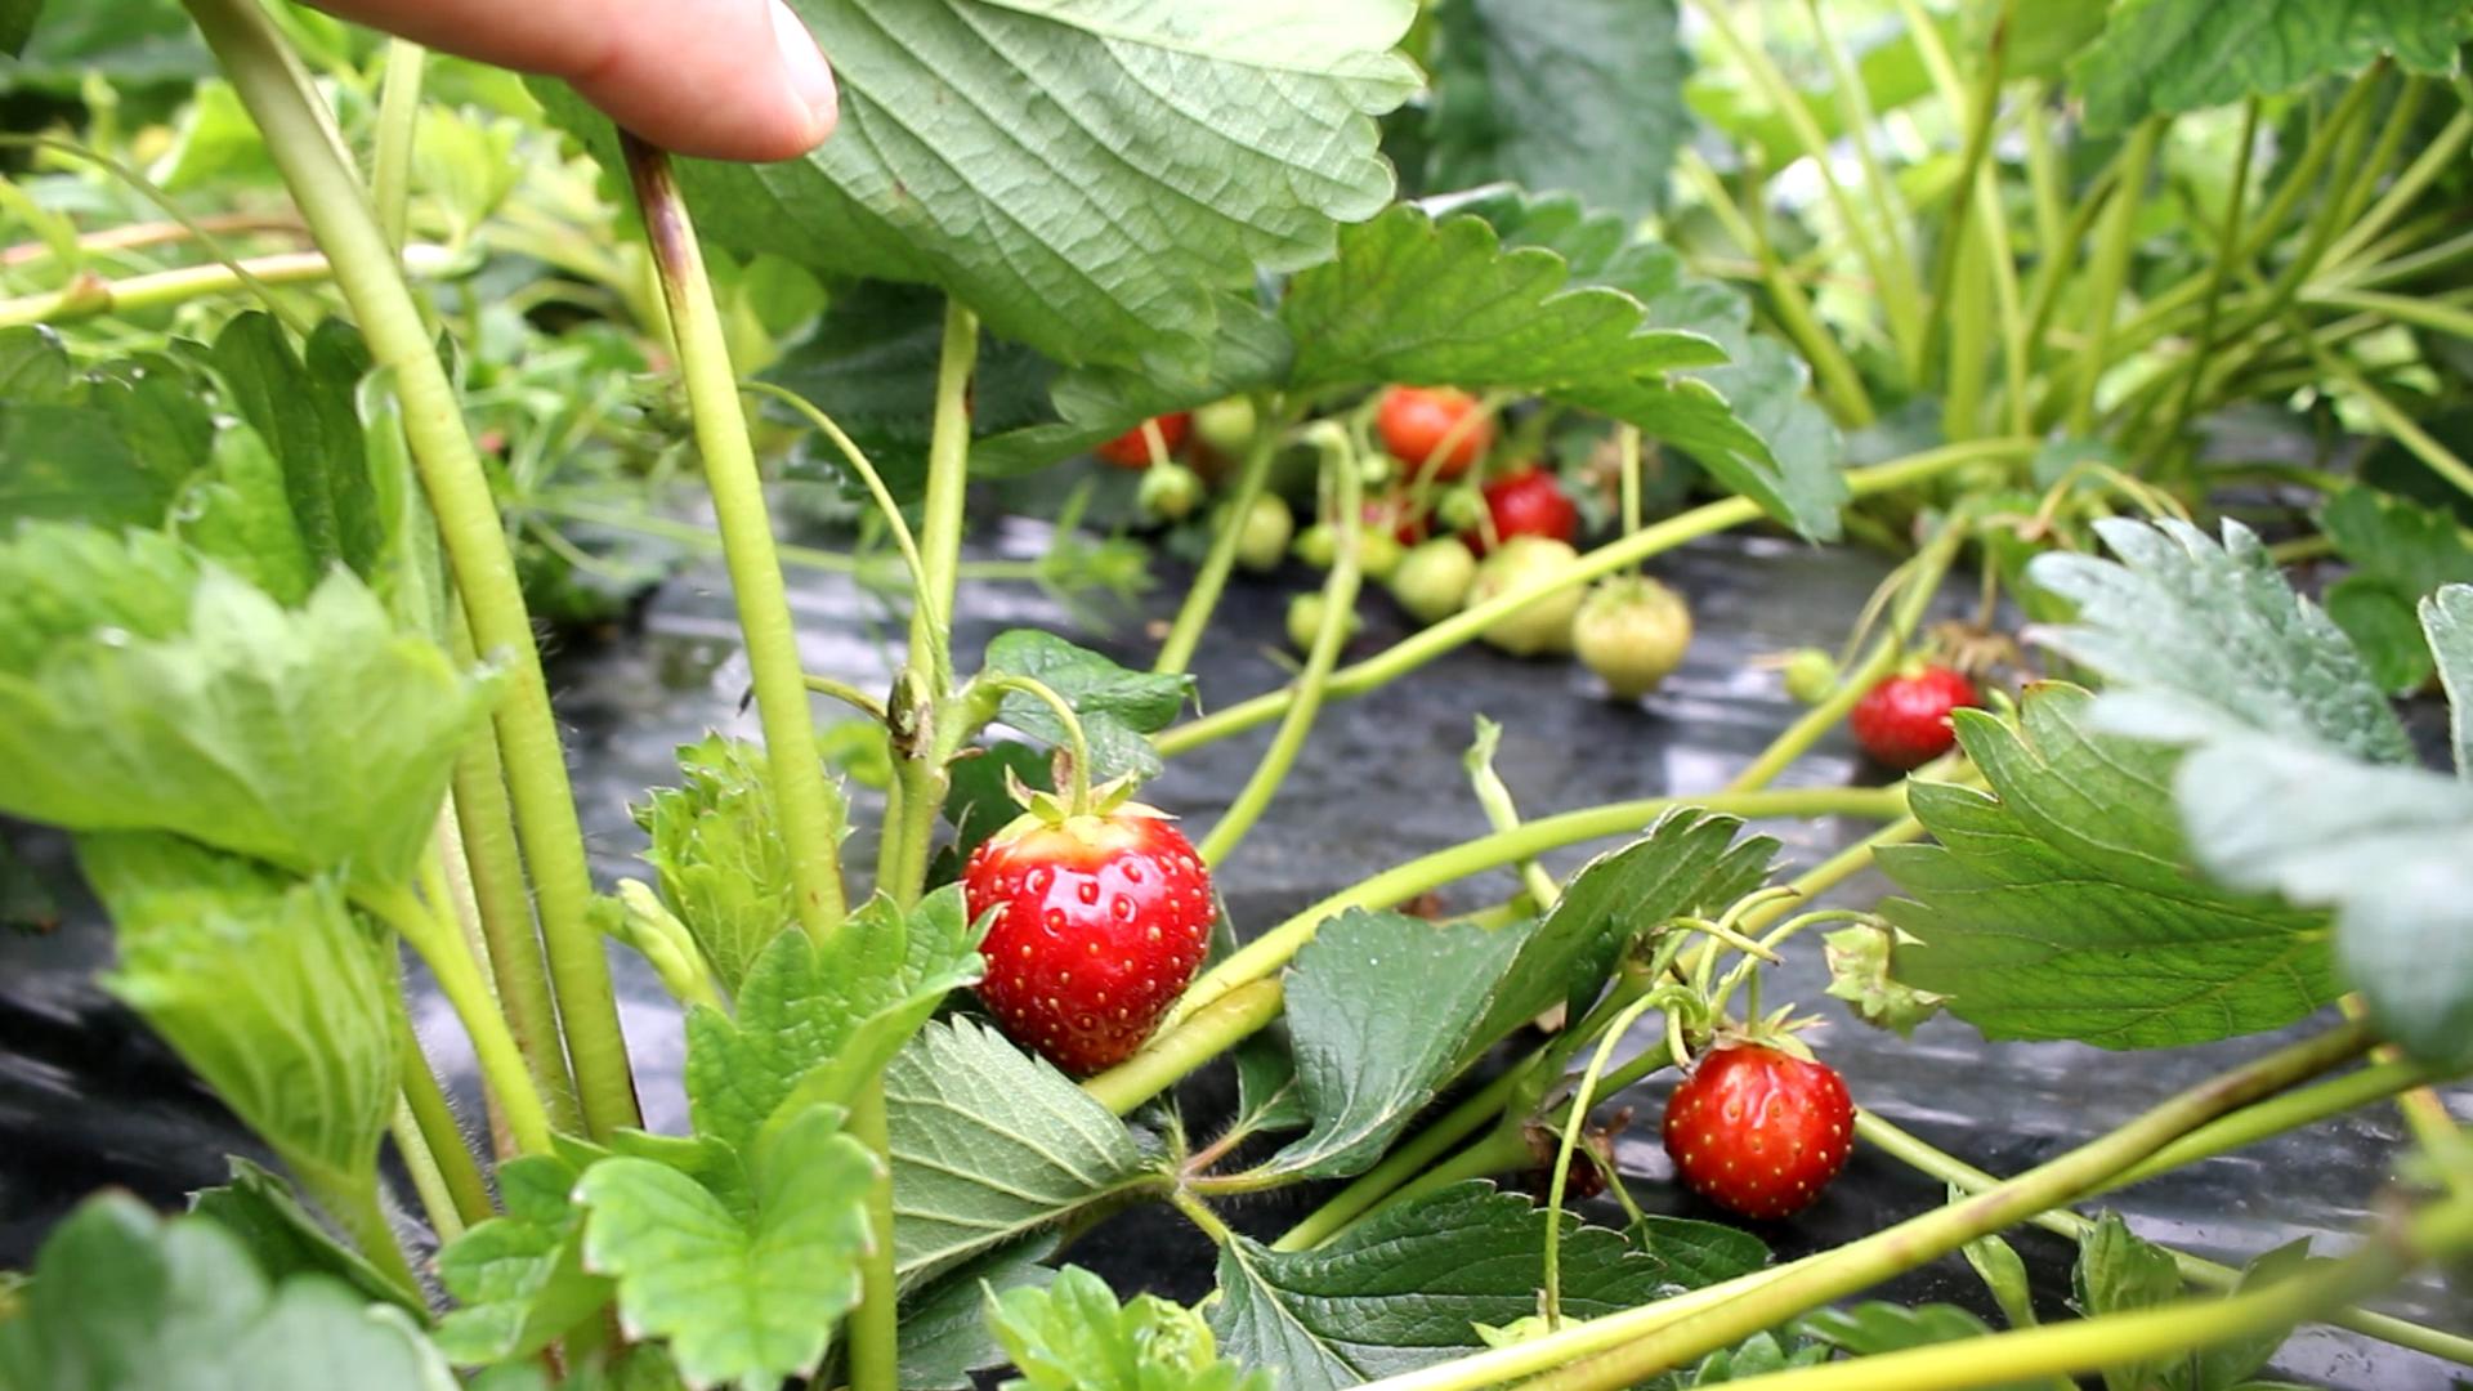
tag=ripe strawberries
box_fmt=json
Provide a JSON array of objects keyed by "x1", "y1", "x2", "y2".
[
  {"x1": 1374, "y1": 373, "x2": 1509, "y2": 491},
  {"x1": 1583, "y1": 578, "x2": 1695, "y2": 705},
  {"x1": 1482, "y1": 464, "x2": 1591, "y2": 554},
  {"x1": 974, "y1": 791, "x2": 1233, "y2": 1085},
  {"x1": 1843, "y1": 661, "x2": 1989, "y2": 772},
  {"x1": 1662, "y1": 1032, "x2": 1873, "y2": 1234}
]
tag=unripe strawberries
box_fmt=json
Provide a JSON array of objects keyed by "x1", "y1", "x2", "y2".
[
  {"x1": 1457, "y1": 528, "x2": 1583, "y2": 664},
  {"x1": 1390, "y1": 521, "x2": 1473, "y2": 632}
]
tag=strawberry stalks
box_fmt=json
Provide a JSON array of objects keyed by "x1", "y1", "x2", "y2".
[
  {"x1": 1012, "y1": 709, "x2": 1131, "y2": 853},
  {"x1": 1613, "y1": 508, "x2": 1661, "y2": 600},
  {"x1": 1707, "y1": 940, "x2": 1791, "y2": 1072},
  {"x1": 1868, "y1": 603, "x2": 1939, "y2": 688}
]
